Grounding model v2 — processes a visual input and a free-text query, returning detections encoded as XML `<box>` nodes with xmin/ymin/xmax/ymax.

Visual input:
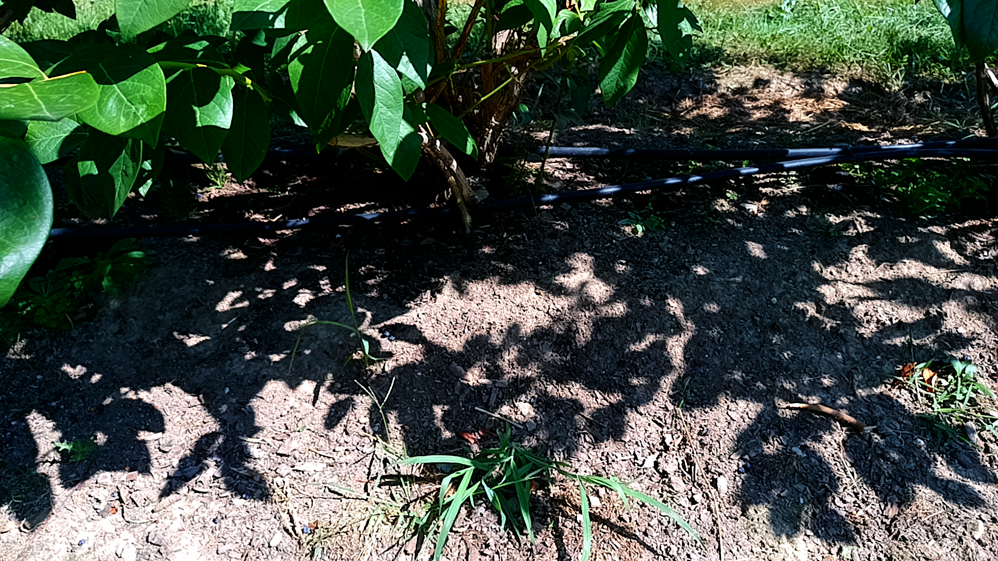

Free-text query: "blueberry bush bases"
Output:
<box><xmin>339</xmin><ymin>45</ymin><xmax>577</xmax><ymax>270</ymax></box>
<box><xmin>960</xmin><ymin>46</ymin><xmax>995</xmax><ymax>197</ymax></box>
